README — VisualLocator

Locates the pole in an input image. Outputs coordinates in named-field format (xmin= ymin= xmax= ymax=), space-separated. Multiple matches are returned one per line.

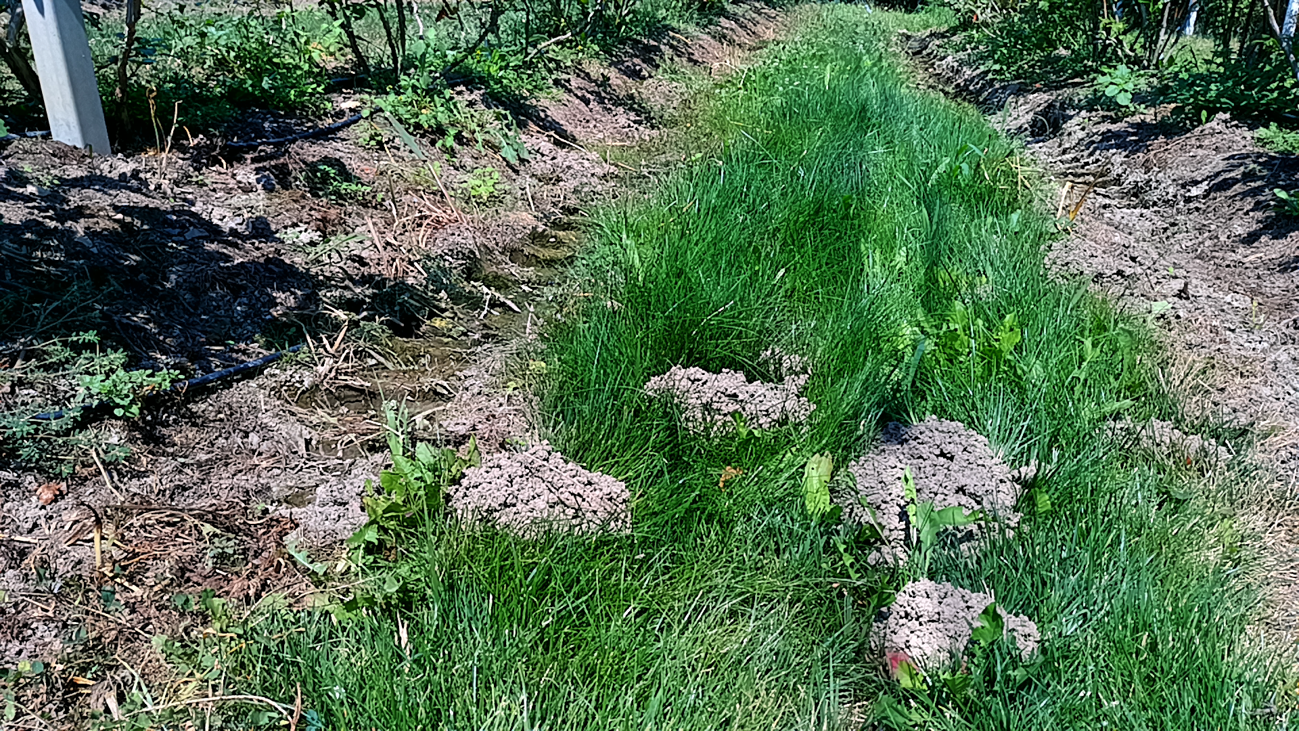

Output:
xmin=4 ymin=2 xmax=140 ymax=170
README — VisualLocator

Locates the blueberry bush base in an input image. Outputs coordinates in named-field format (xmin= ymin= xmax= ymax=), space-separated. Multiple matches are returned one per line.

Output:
xmin=334 ymin=0 xmax=457 ymax=112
